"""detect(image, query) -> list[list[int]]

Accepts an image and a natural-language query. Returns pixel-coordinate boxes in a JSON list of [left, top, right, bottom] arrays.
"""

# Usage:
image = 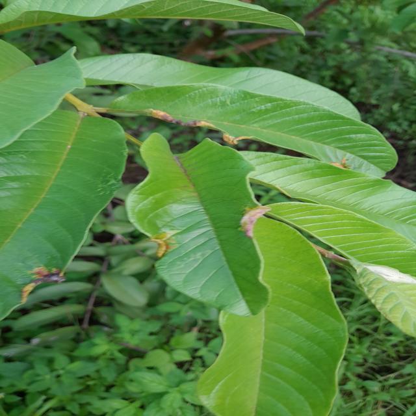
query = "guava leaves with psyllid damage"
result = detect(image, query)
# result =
[[85, 78, 403, 181], [108, 133, 292, 321]]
